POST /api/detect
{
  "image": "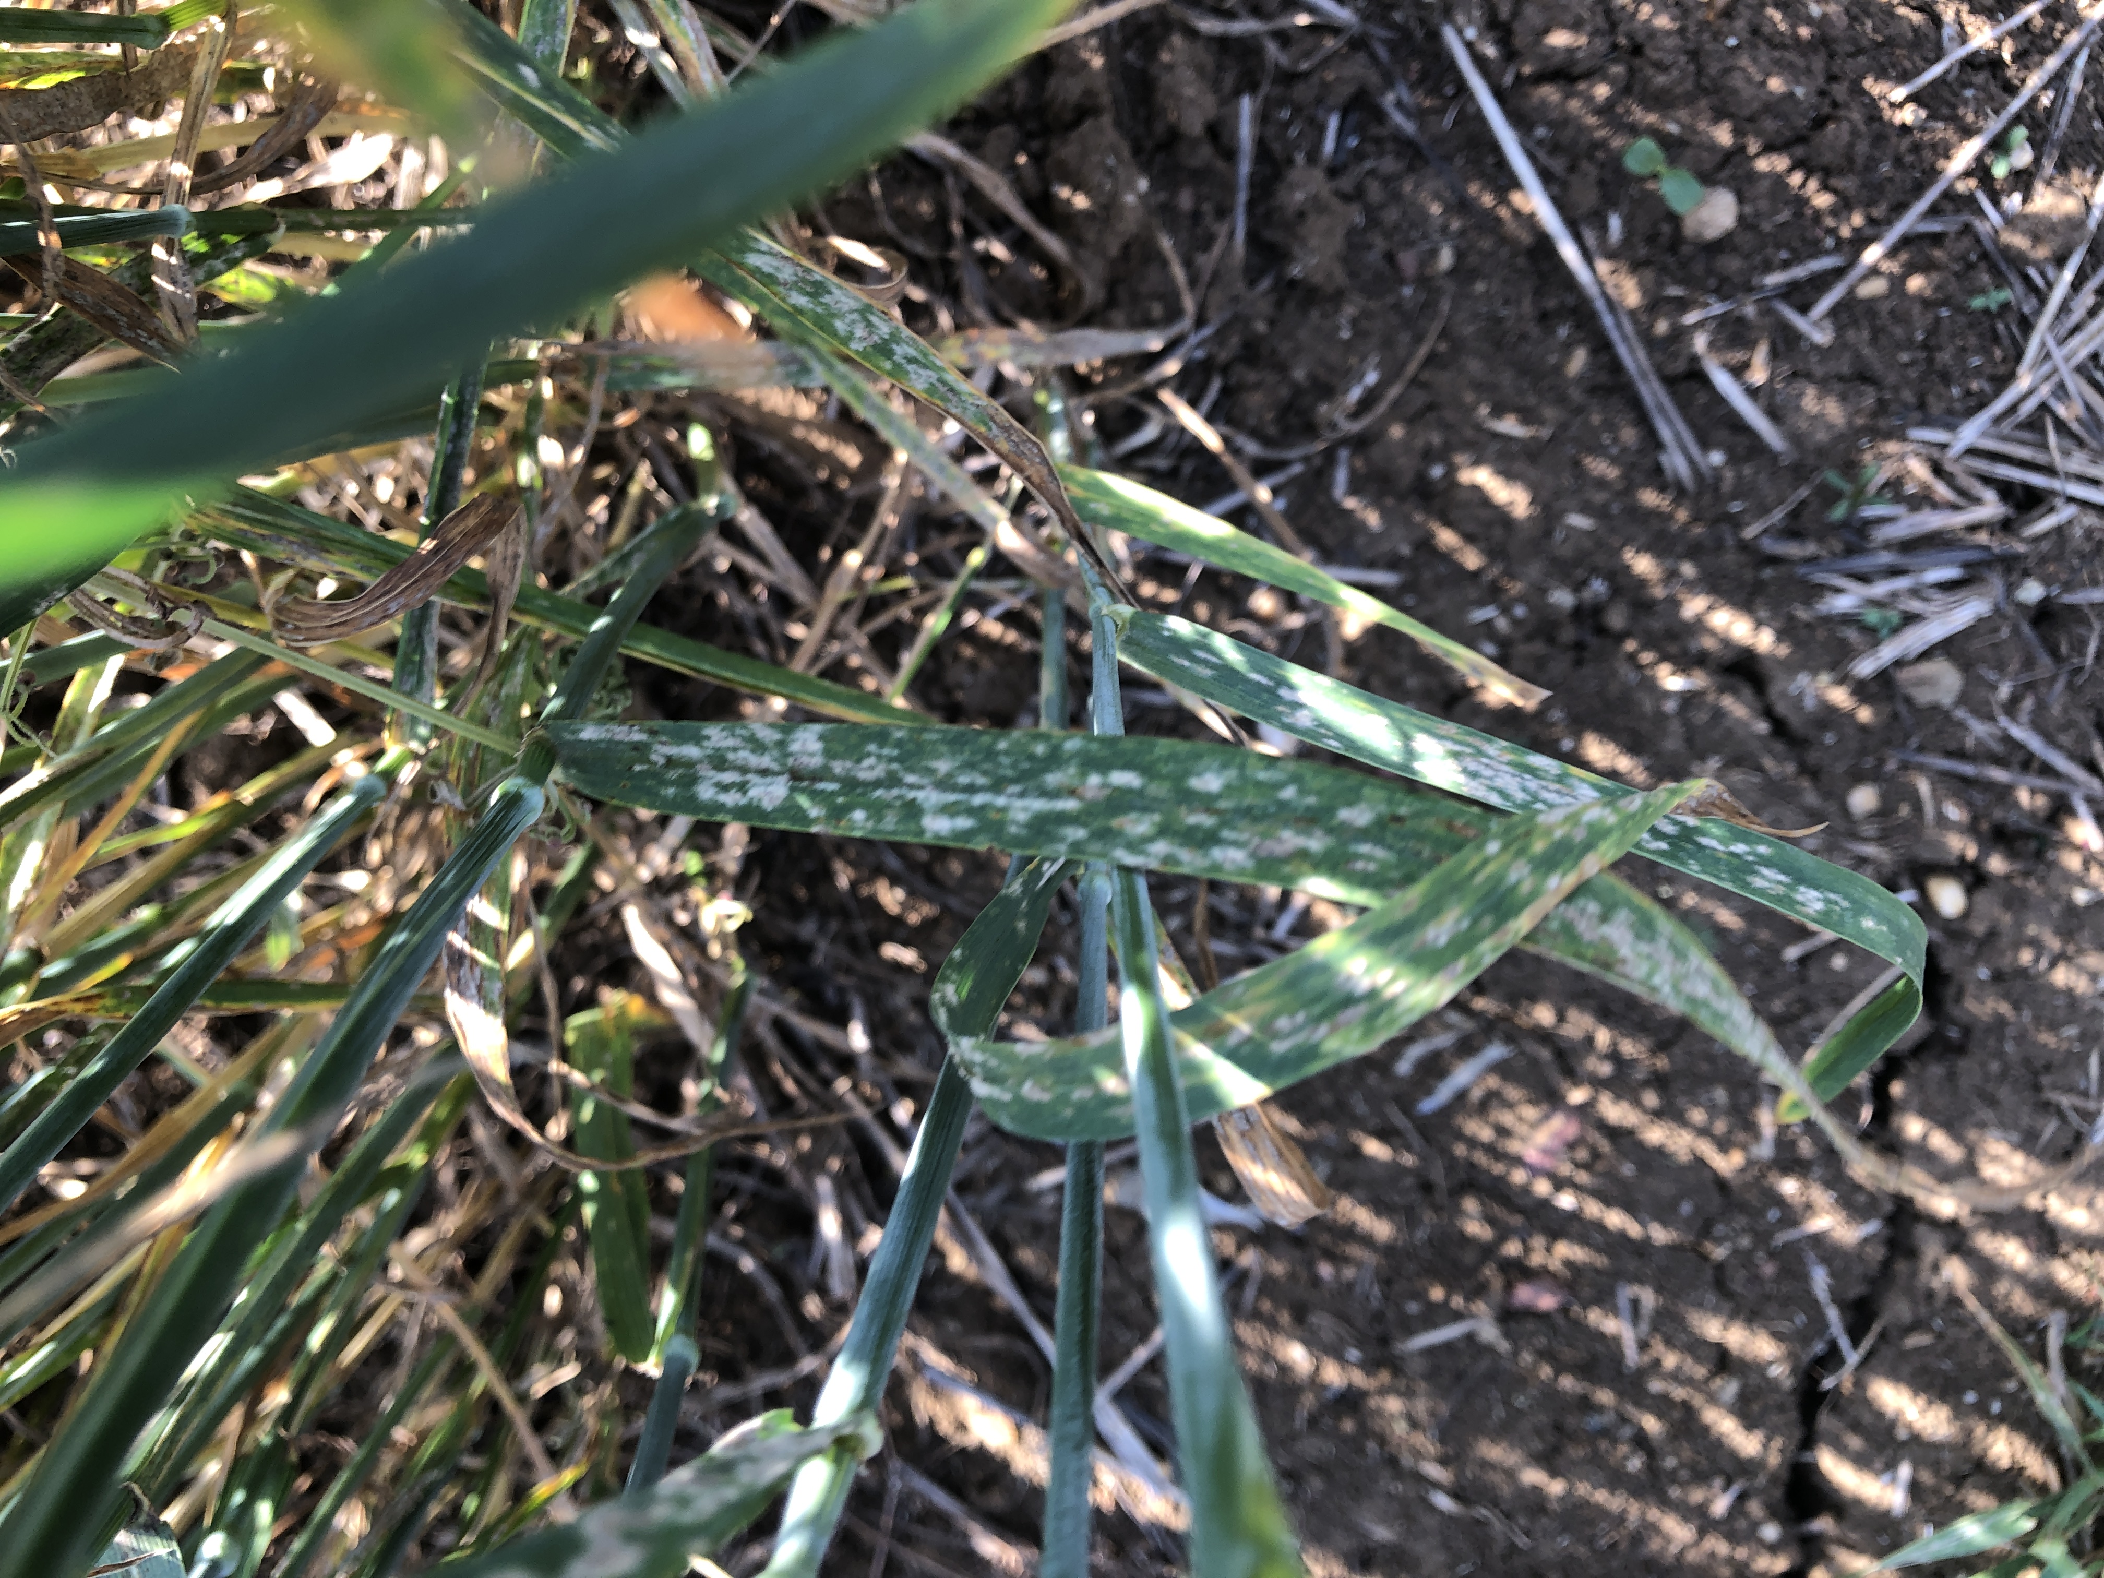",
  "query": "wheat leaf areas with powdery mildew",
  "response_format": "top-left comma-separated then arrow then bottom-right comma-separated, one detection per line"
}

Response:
1071,564 -> 1926,1019
497,30 -> 651,146
935,790 -> 1677,1143
506,1398 -> 821,1577
706,178 -> 1117,543
587,662 -> 1825,1152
